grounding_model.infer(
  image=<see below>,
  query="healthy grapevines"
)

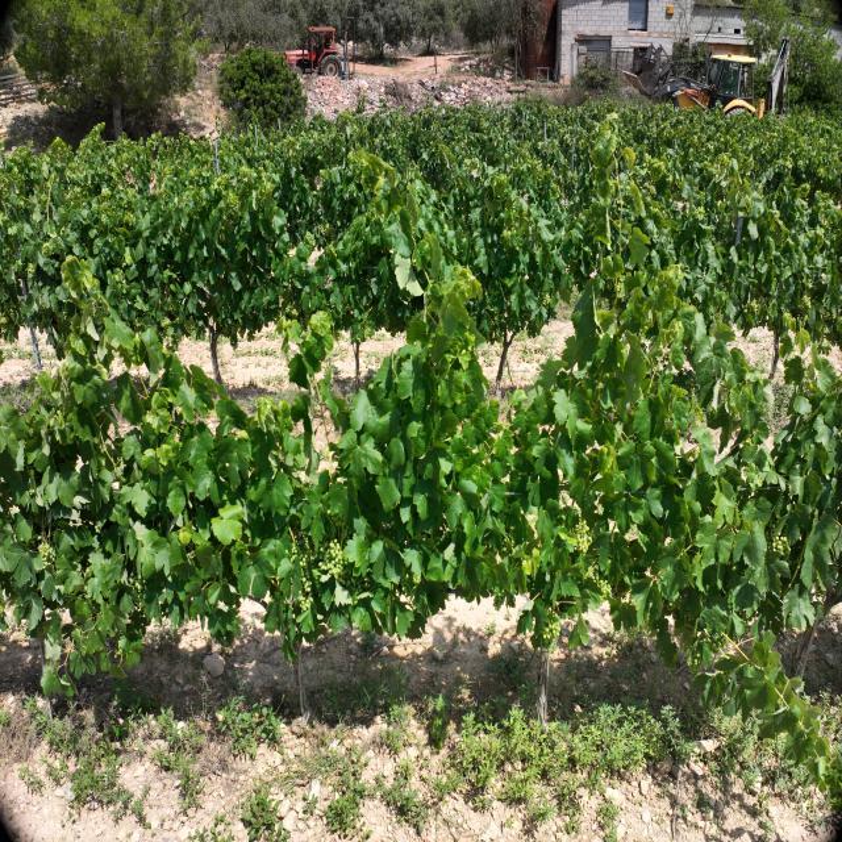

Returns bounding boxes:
[0,326,162,749]
[745,351,842,756]
[132,362,416,756]
[420,318,778,758]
